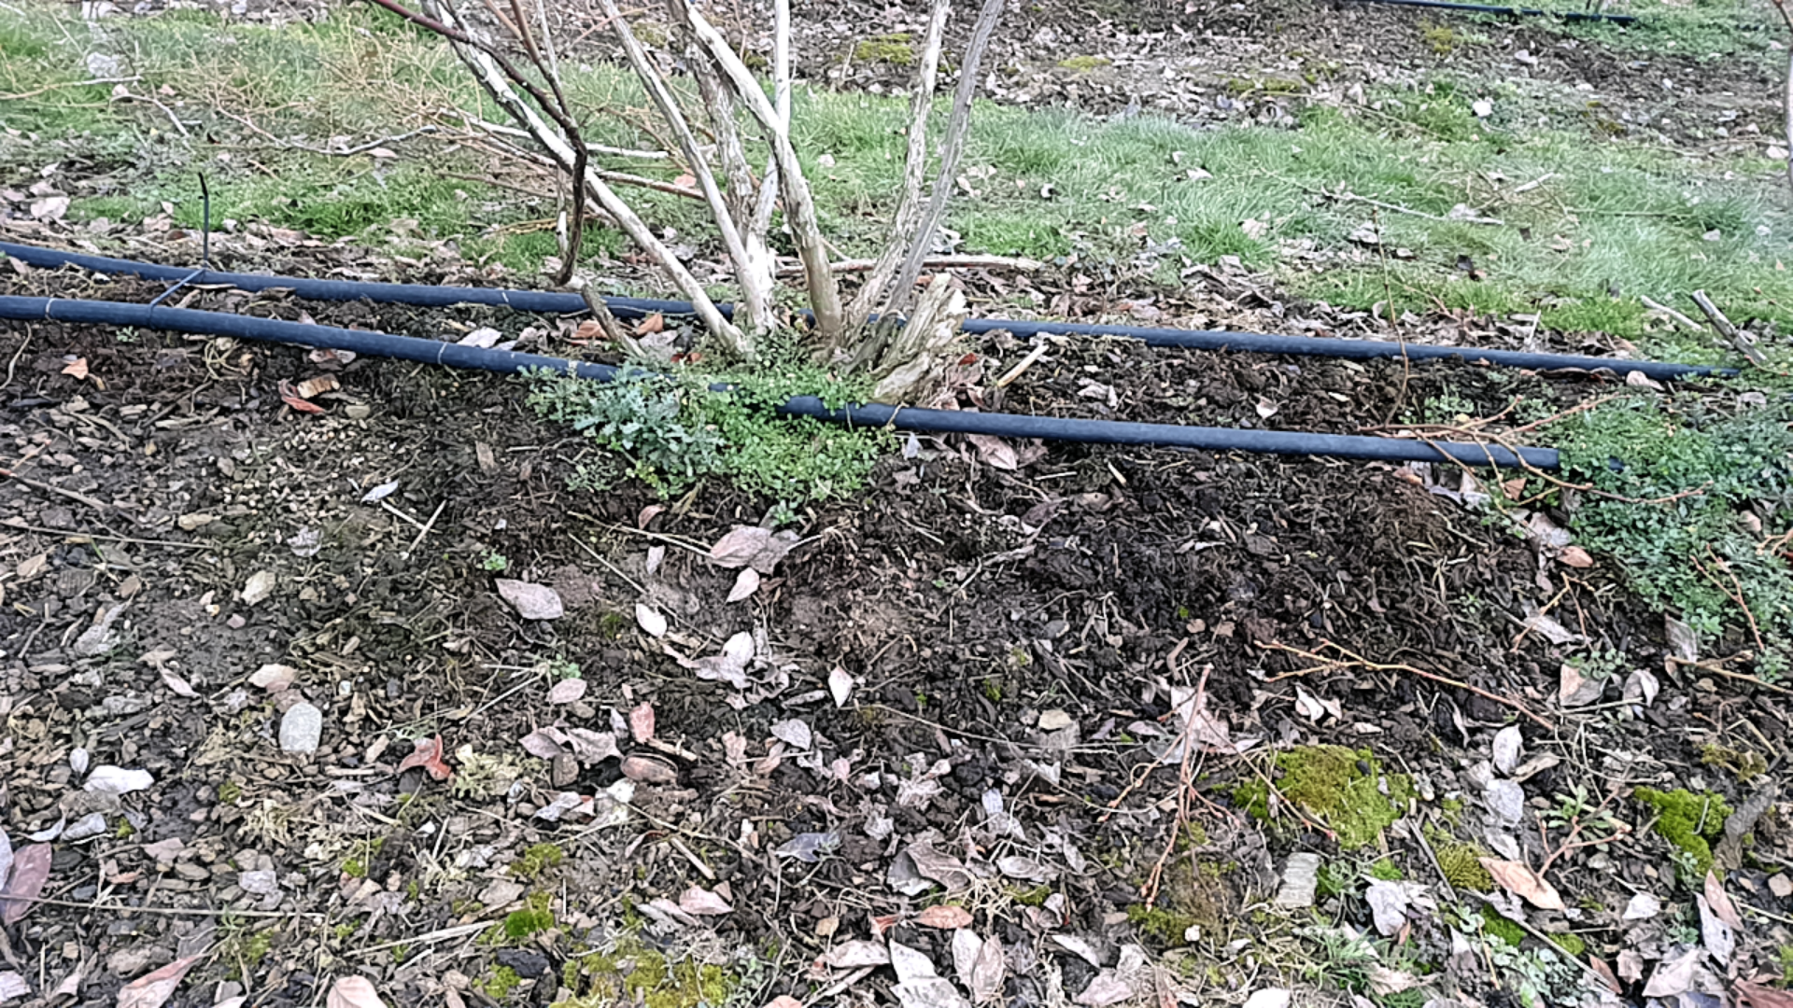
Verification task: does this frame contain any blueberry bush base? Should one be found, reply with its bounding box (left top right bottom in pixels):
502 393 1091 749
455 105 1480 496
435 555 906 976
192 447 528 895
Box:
562 121 991 417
